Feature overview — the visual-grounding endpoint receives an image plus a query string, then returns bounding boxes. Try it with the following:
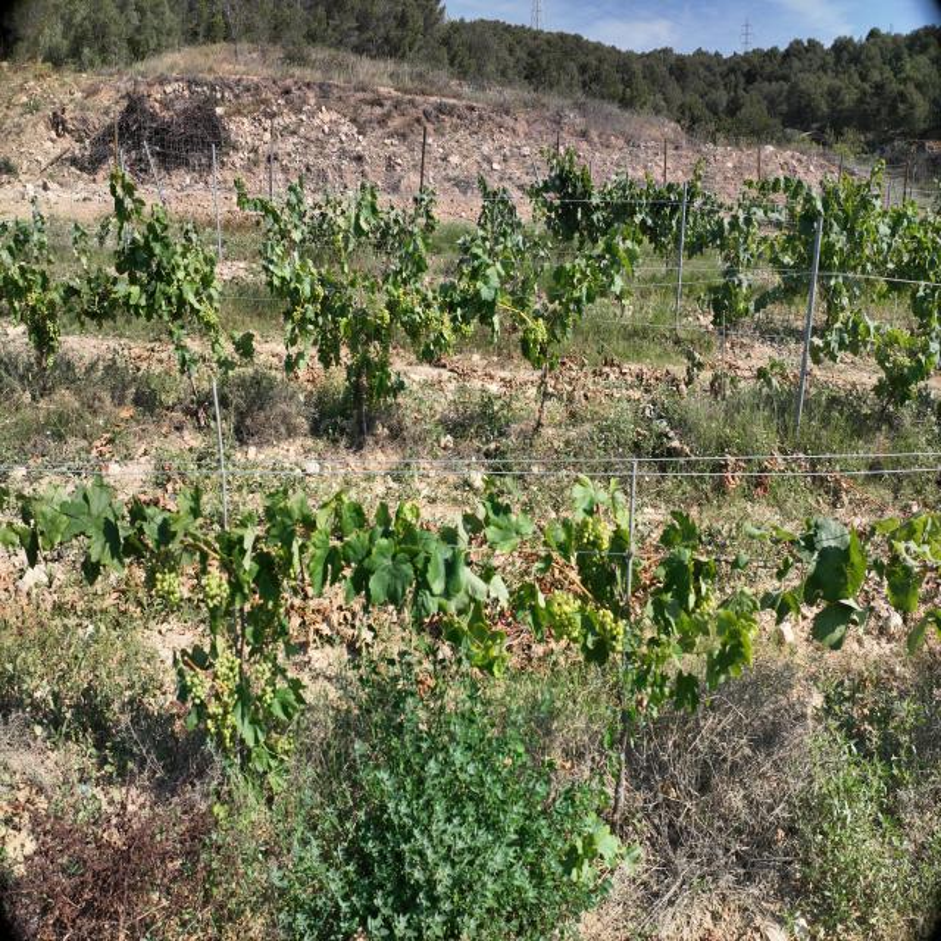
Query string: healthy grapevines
[493,469,941,856]
[0,455,512,818]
